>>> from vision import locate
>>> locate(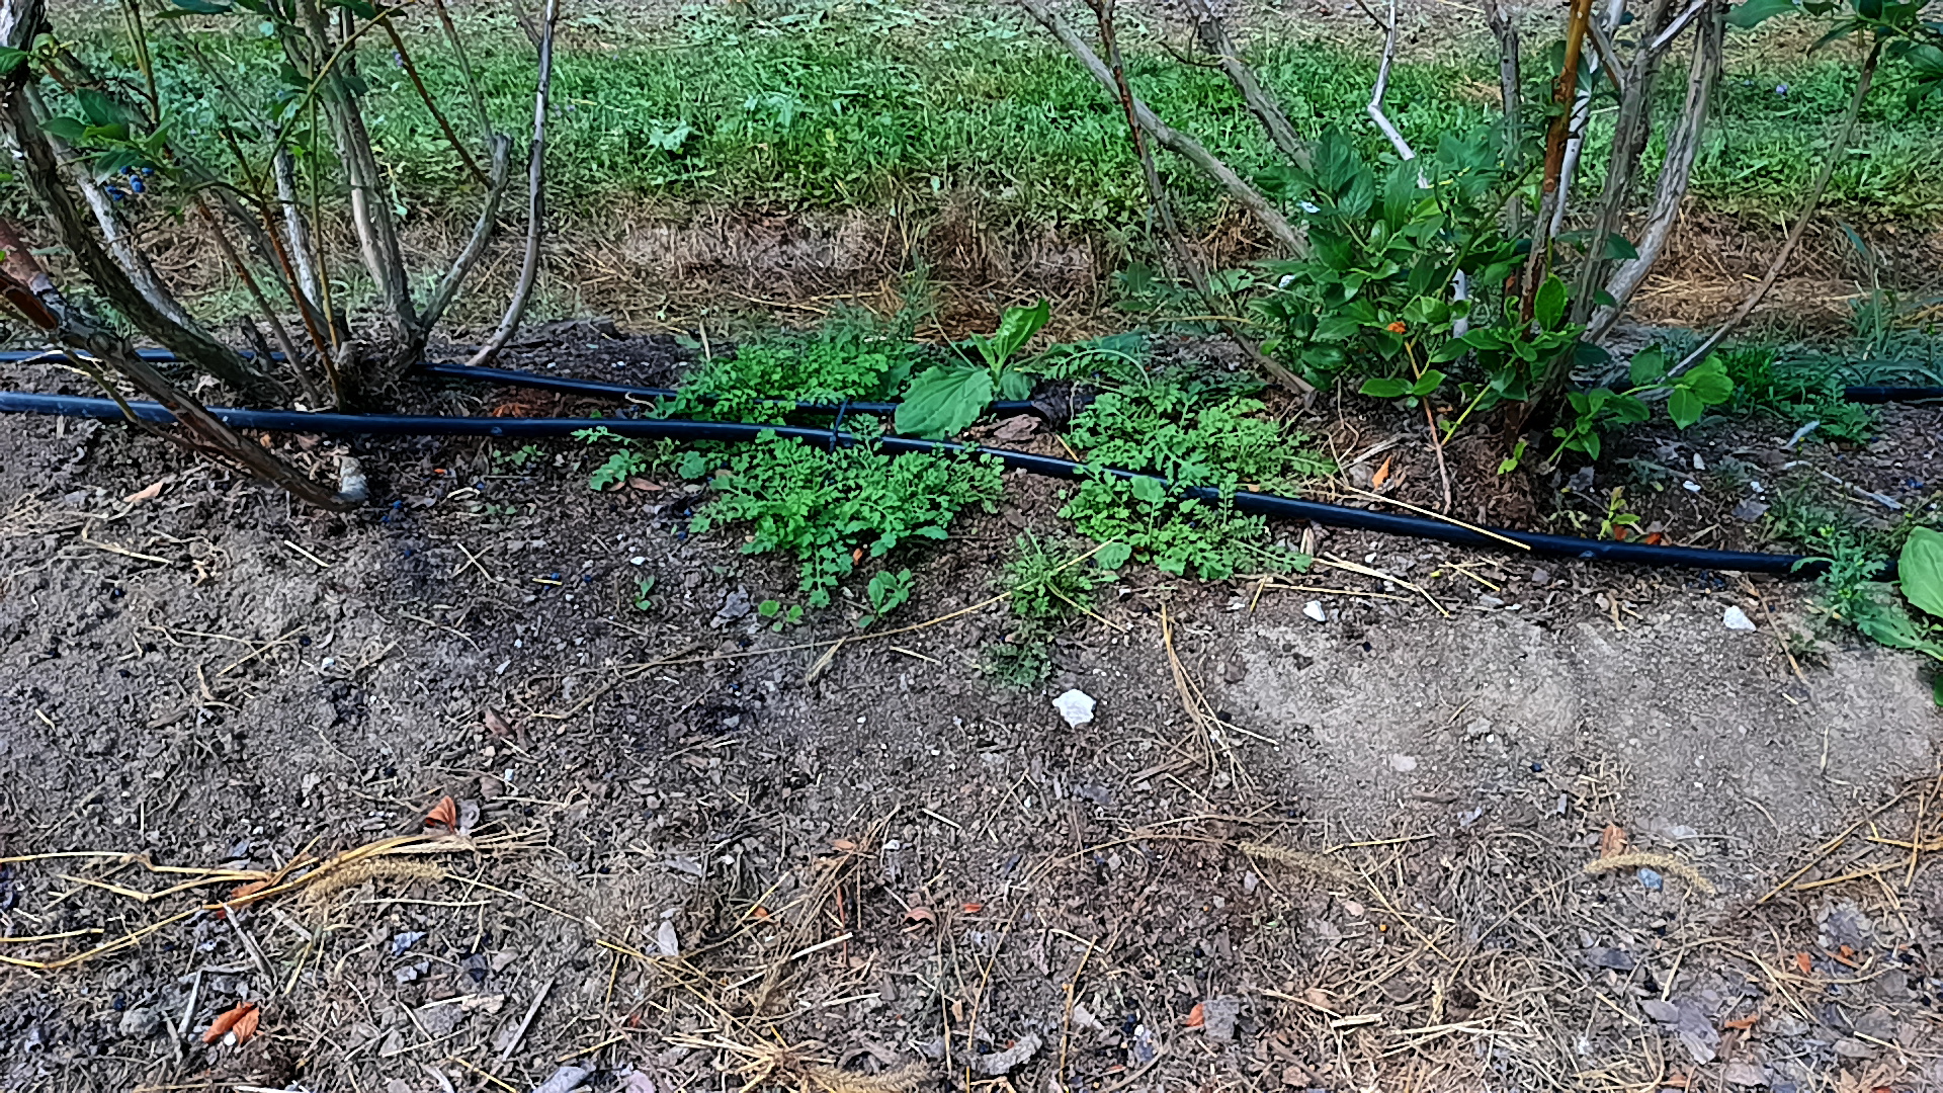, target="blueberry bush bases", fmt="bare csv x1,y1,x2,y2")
34,164,577,520
1205,179,1750,617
